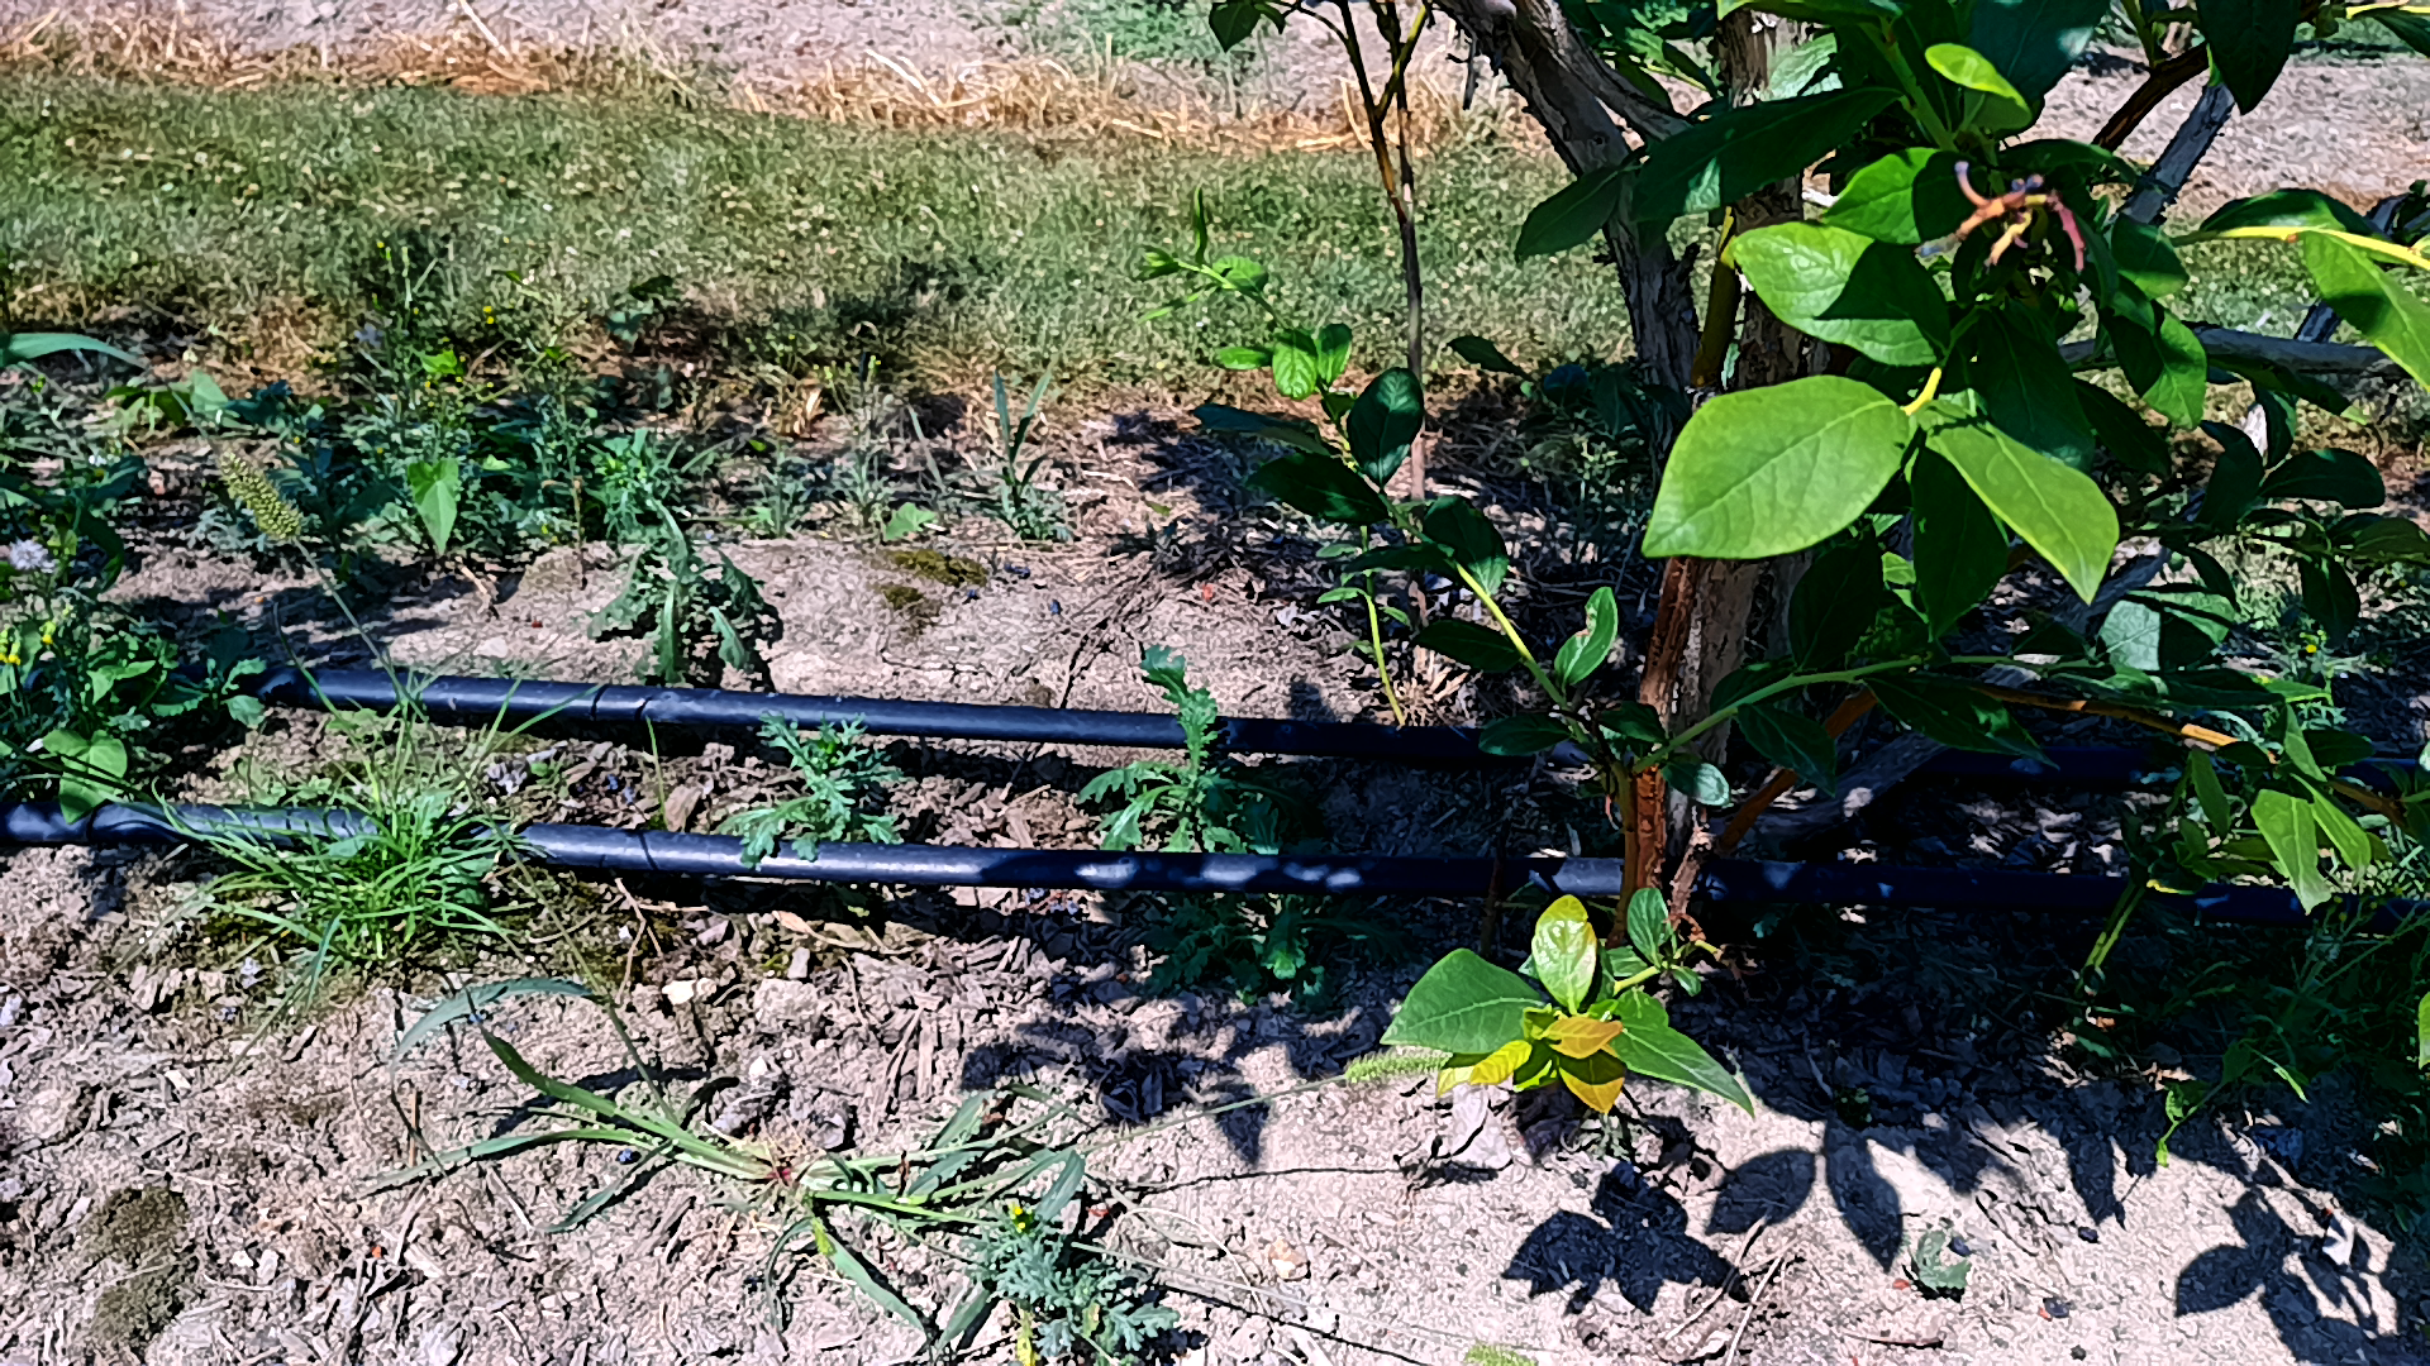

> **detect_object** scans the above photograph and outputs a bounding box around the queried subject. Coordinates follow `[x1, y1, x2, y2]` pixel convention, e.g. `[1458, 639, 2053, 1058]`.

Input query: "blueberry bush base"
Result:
[1364, 468, 2326, 1143]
